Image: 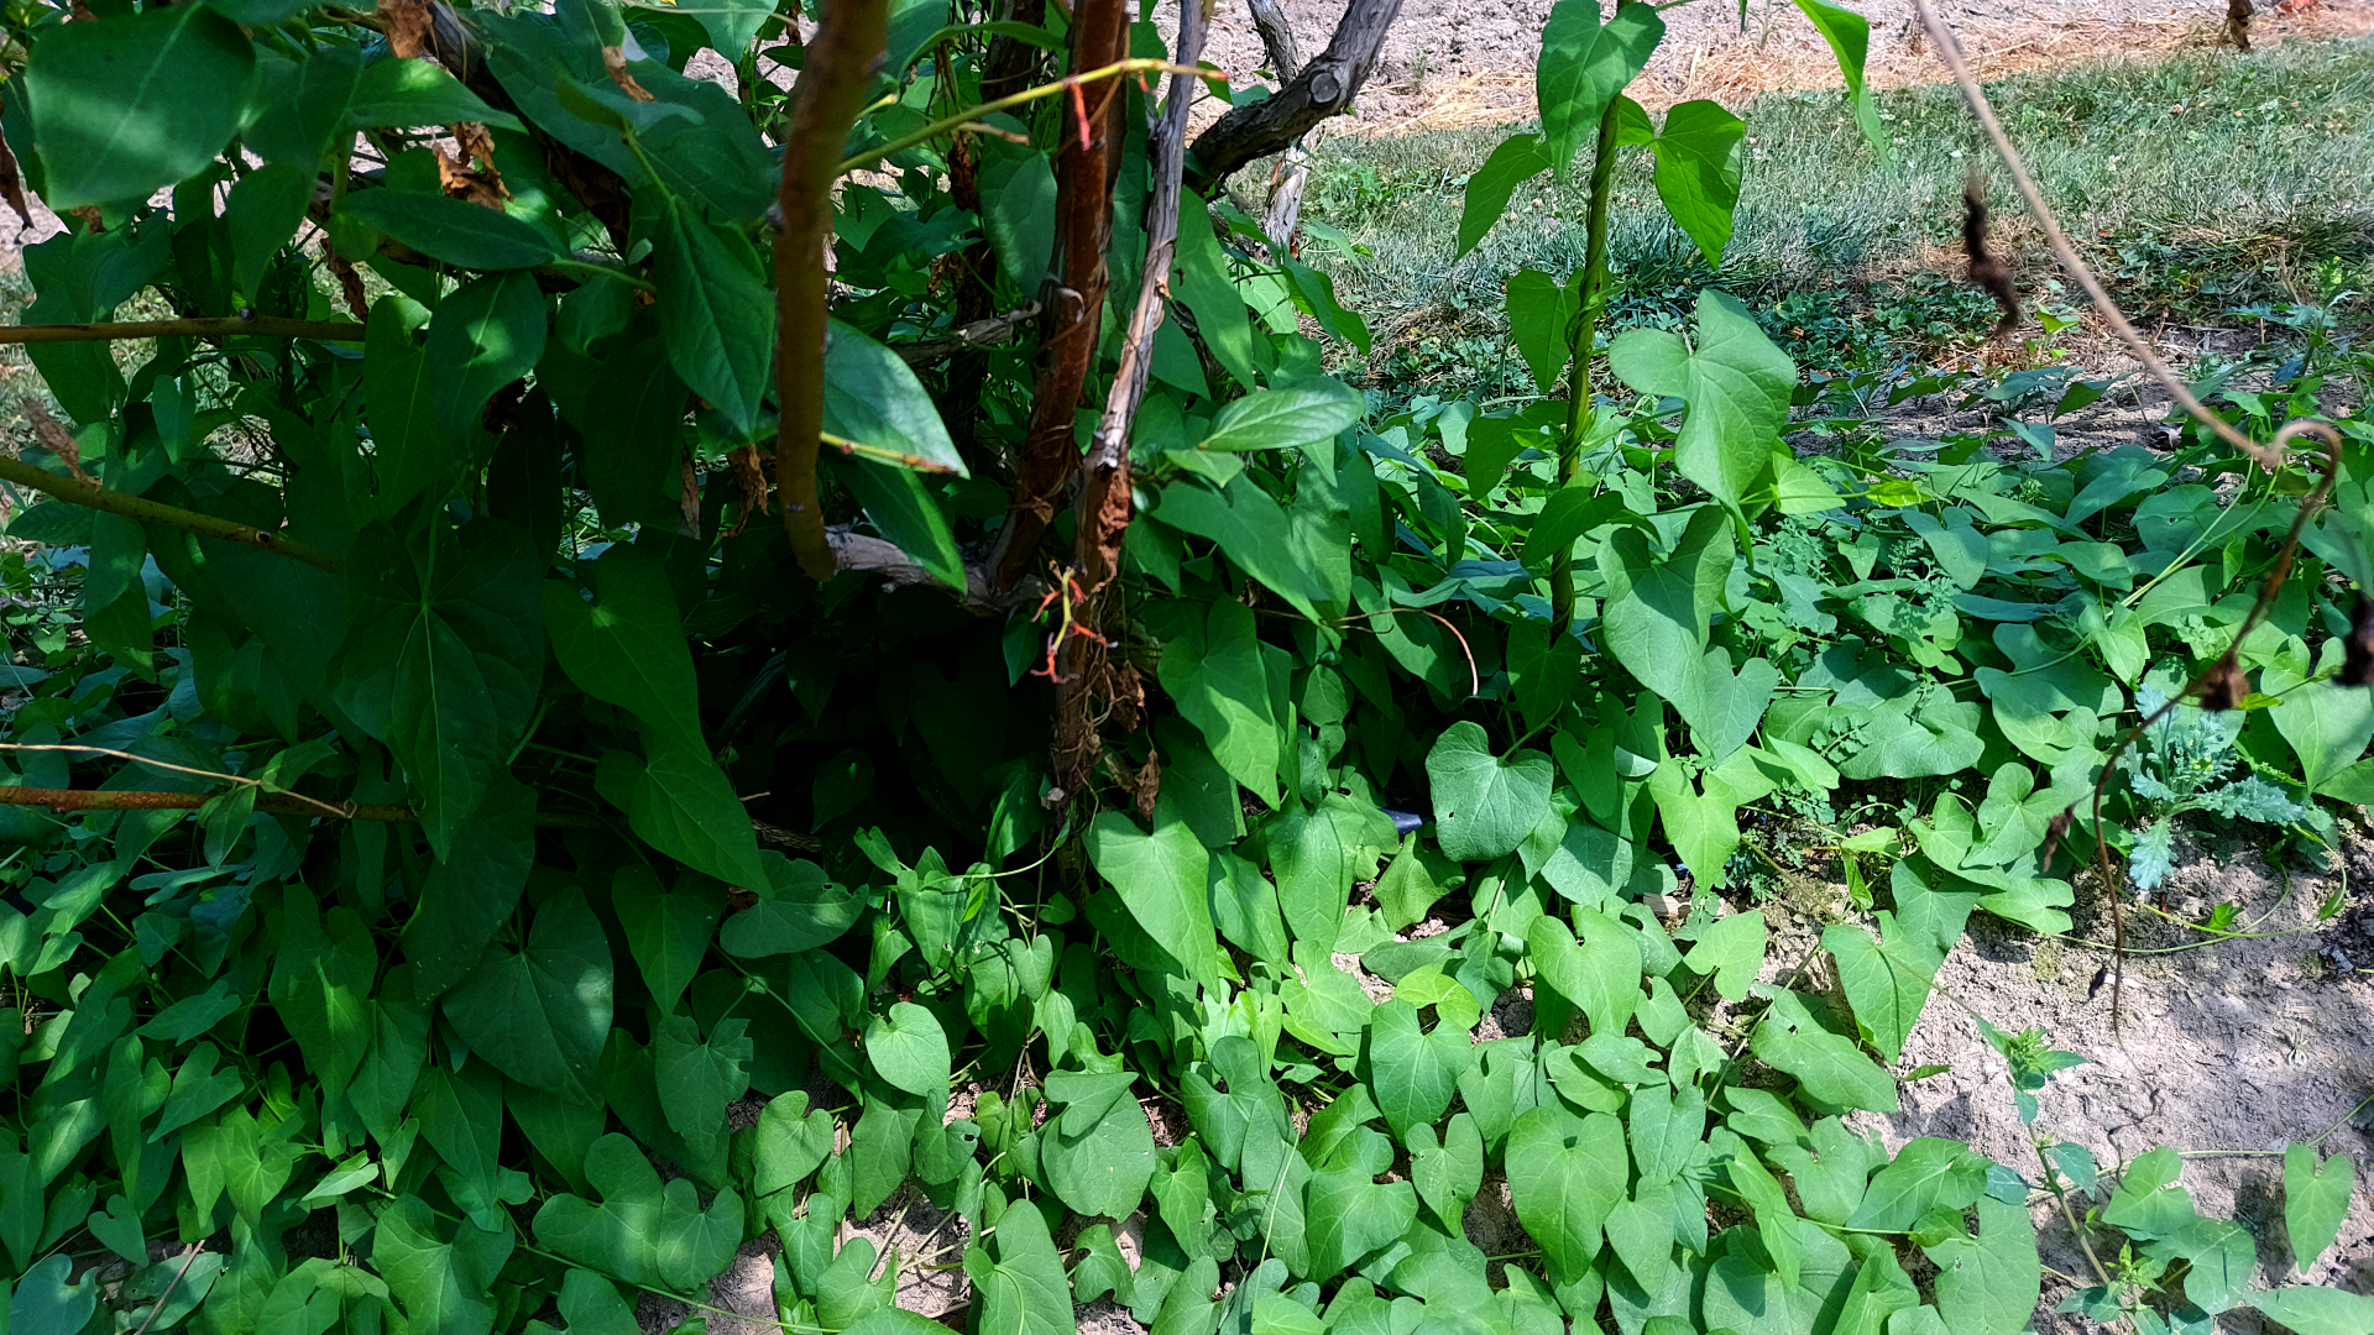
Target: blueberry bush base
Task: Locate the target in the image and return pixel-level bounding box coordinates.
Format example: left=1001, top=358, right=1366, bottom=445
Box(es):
left=147, top=138, right=1429, bottom=900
